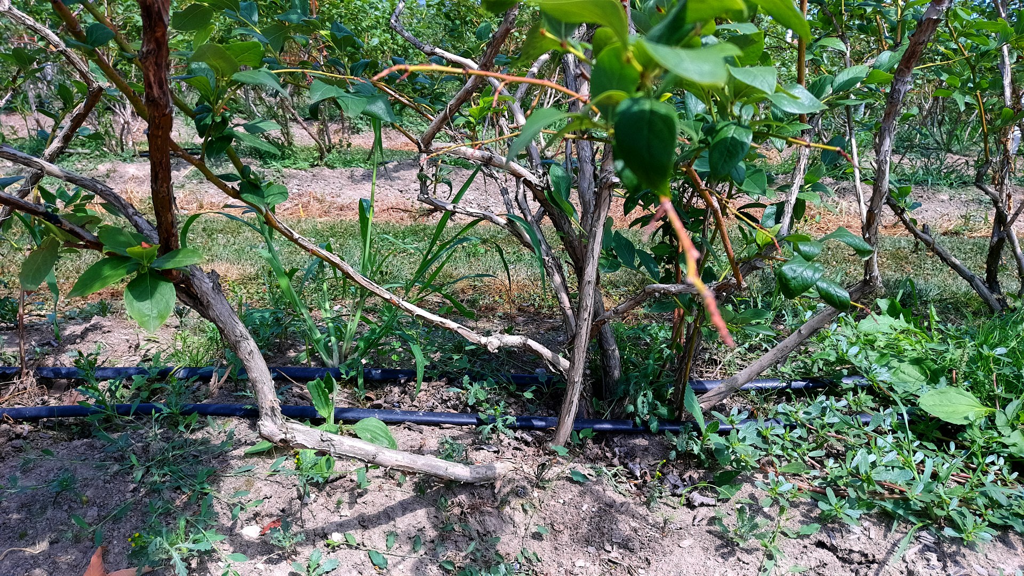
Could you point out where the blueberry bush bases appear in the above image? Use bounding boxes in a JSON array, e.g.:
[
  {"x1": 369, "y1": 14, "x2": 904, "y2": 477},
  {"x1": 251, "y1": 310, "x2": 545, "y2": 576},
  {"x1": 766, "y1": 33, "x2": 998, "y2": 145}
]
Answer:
[
  {"x1": 929, "y1": 241, "x2": 1023, "y2": 372},
  {"x1": 279, "y1": 131, "x2": 366, "y2": 181},
  {"x1": 498, "y1": 273, "x2": 775, "y2": 465},
  {"x1": 85, "y1": 122, "x2": 146, "y2": 171}
]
